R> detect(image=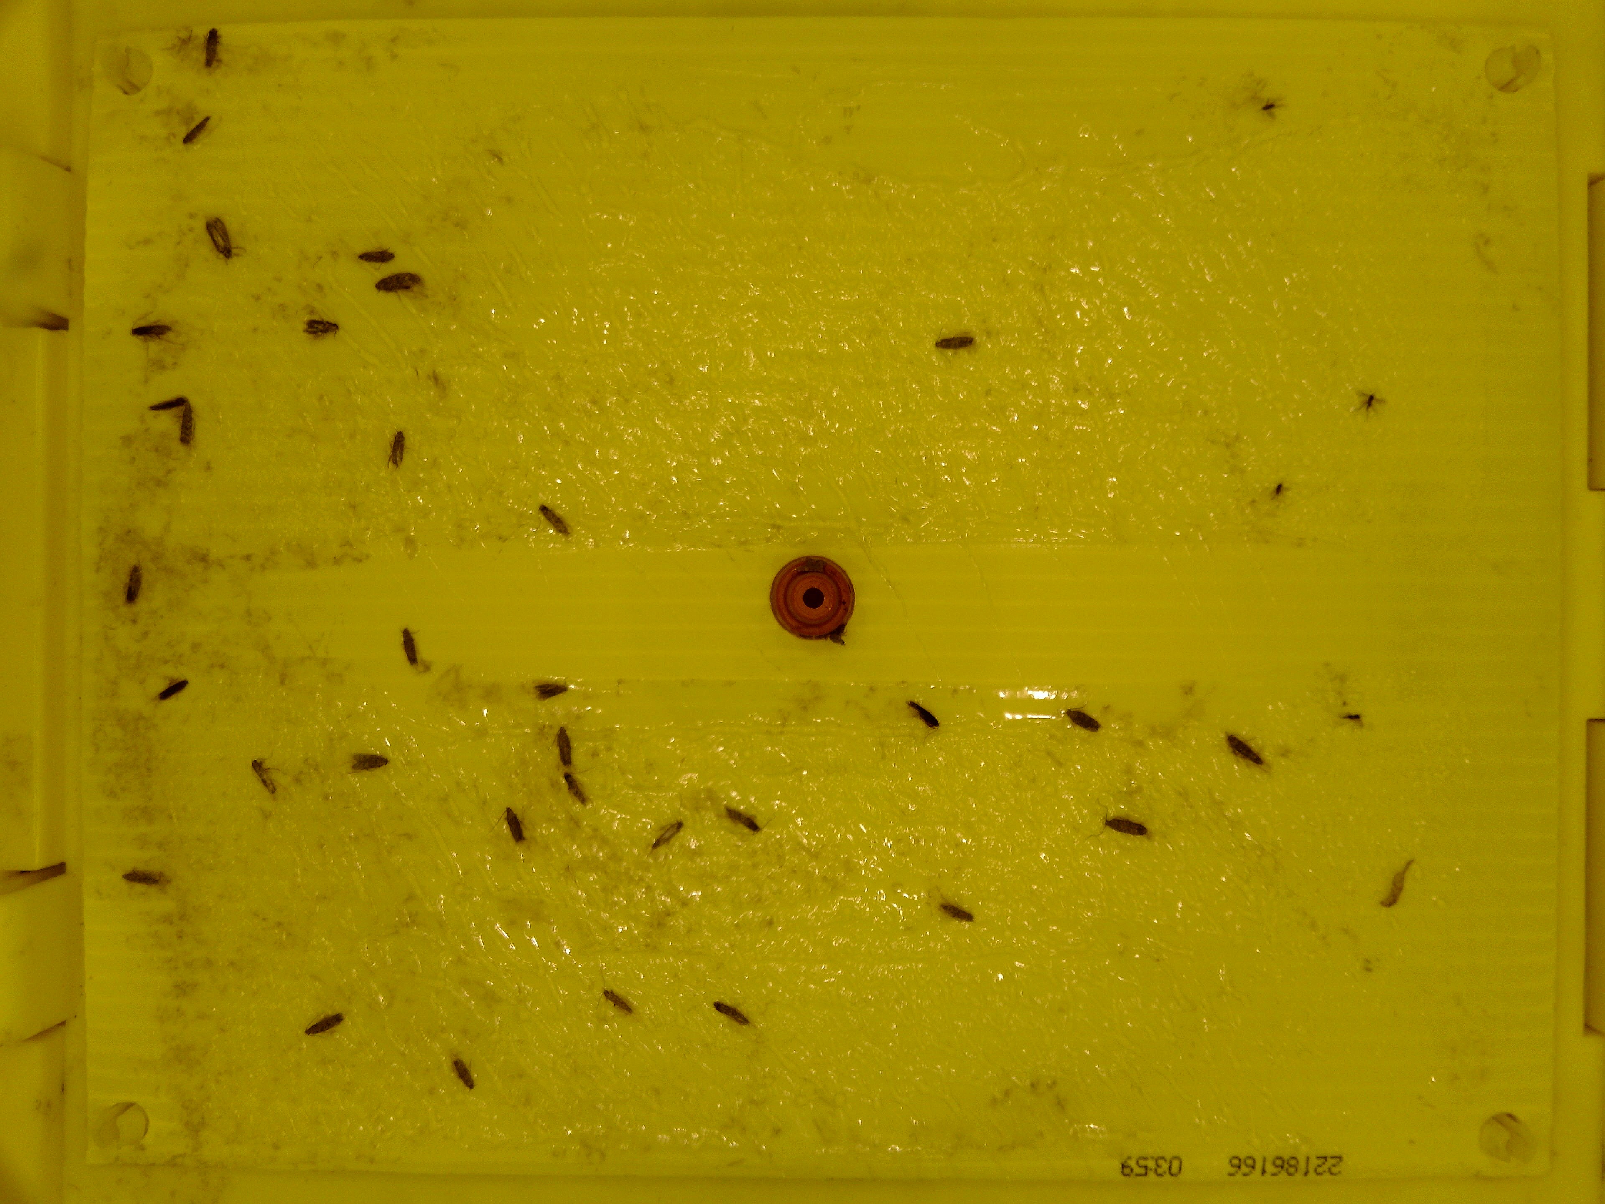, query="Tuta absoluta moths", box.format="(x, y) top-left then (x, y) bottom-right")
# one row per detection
(123, 561), (143, 604)
(303, 316), (339, 337)
(451, 1055), (475, 1089)
(601, 987), (634, 1015)
(554, 724), (574, 767)
(562, 771), (590, 806)
(182, 113), (211, 145)
(532, 679), (571, 700)
(938, 897), (973, 923)
(356, 247), (394, 264)
(304, 1010), (344, 1036)
(724, 803), (762, 833)
(1063, 707), (1100, 732)
(387, 428), (406, 467)
(130, 319), (173, 342)
(374, 270), (424, 294)
(349, 751), (388, 771)
(205, 215), (238, 260)
(202, 27), (222, 68)
(906, 697), (939, 728)
(119, 866), (162, 885)
(250, 755), (278, 796)
(156, 676), (188, 700)
(179, 400), (194, 446)
(1224, 730), (1267, 769)
(650, 819), (683, 849)
(1103, 814), (1148, 837)
(537, 502), (571, 537)
(400, 625), (430, 673)
(502, 806), (526, 843)
(934, 331), (974, 350)
(712, 998), (751, 1027)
